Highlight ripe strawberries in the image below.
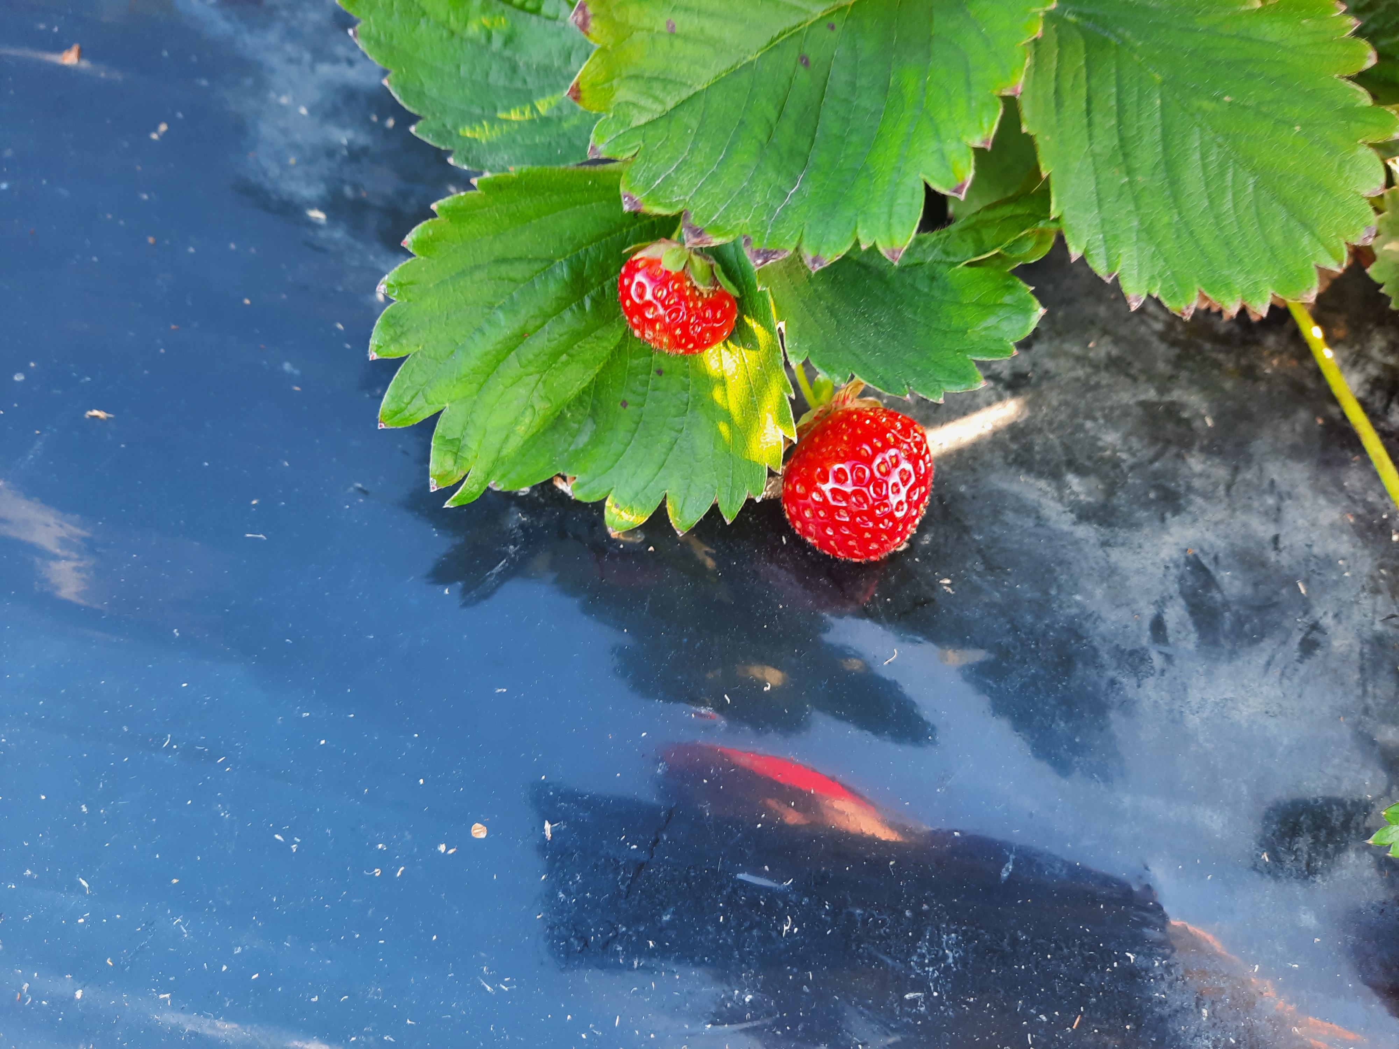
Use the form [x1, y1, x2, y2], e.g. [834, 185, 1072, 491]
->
[591, 251, 741, 354]
[783, 405, 939, 564]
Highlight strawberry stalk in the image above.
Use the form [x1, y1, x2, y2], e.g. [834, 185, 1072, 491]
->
[763, 296, 836, 438]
